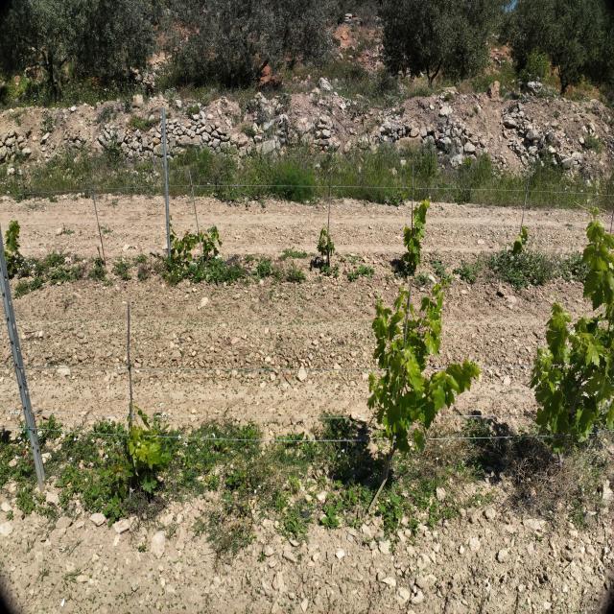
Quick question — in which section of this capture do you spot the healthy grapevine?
[527,250,614,488]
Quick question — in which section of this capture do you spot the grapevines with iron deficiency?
[114,397,175,502]
[352,282,484,493]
